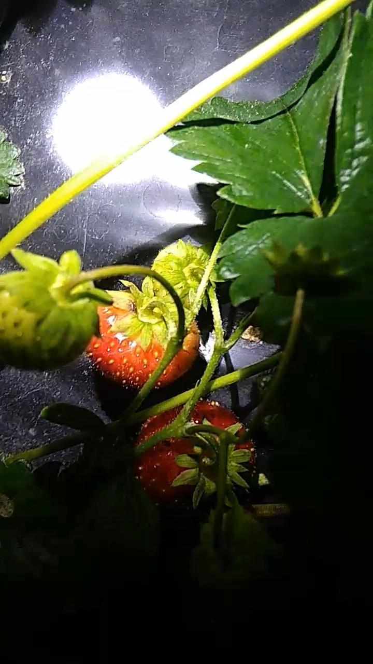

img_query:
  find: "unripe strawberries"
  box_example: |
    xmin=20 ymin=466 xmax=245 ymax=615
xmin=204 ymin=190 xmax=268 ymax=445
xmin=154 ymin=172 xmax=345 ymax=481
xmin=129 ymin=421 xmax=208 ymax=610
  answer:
xmin=147 ymin=234 xmax=225 ymax=301
xmin=0 ymin=259 xmax=91 ymax=368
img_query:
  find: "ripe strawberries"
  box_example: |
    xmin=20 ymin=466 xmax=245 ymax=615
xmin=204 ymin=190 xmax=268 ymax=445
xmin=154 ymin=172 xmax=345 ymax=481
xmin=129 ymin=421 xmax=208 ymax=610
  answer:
xmin=92 ymin=288 xmax=198 ymax=387
xmin=137 ymin=404 xmax=257 ymax=503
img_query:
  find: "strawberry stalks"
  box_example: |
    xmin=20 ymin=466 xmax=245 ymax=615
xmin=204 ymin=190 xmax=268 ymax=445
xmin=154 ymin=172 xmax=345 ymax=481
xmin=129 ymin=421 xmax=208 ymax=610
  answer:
xmin=144 ymin=307 xmax=190 ymax=393
xmin=61 ymin=251 xmax=142 ymax=291
xmin=202 ymin=412 xmax=262 ymax=519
